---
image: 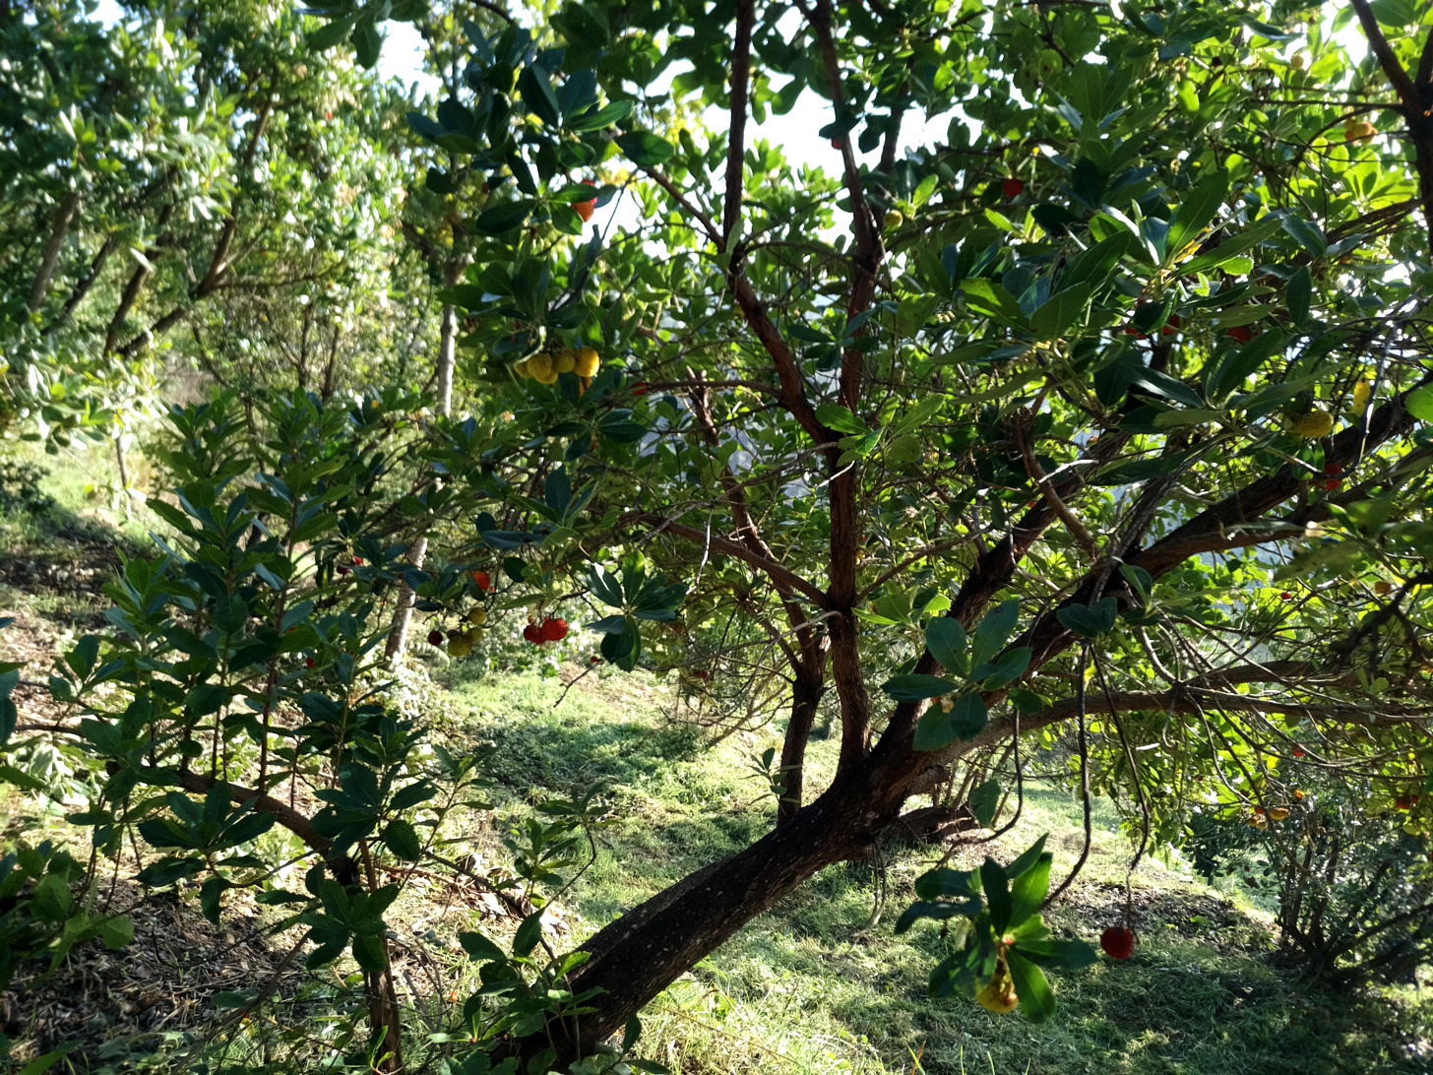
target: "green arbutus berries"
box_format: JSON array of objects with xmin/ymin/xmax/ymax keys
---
[
  {"xmin": 448, "ymin": 635, "xmax": 472, "ymax": 656},
  {"xmin": 1250, "ymin": 817, "xmax": 1258, "ymax": 826},
  {"xmin": 469, "ymin": 607, "xmax": 486, "ymax": 623},
  {"xmin": 1291, "ymin": 56, "xmax": 1304, "ymax": 67},
  {"xmin": 467, "ymin": 627, "xmax": 483, "ymax": 641},
  {"xmin": 883, "ymin": 209, "xmax": 903, "ymax": 228},
  {"xmin": 978, "ymin": 983, "xmax": 1019, "ymax": 1014},
  {"xmin": 1354, "ymin": 122, "xmax": 1371, "ymax": 135},
  {"xmin": 855, "ymin": 550, "xmax": 866, "ymax": 560},
  {"xmin": 855, "ymin": 557, "xmax": 861, "ymax": 566},
  {"xmin": 1344, "ymin": 118, "xmax": 1359, "ymax": 130},
  {"xmin": 1258, "ymin": 820, "xmax": 1268, "ymax": 830}
]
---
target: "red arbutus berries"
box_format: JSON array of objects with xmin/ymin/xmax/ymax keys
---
[
  {"xmin": 1100, "ymin": 925, "xmax": 1134, "ymax": 959},
  {"xmin": 337, "ymin": 563, "xmax": 350, "ymax": 574},
  {"xmin": 472, "ymin": 572, "xmax": 490, "ymax": 590},
  {"xmin": 1396, "ymin": 796, "xmax": 1412, "ymax": 810},
  {"xmin": 545, "ymin": 618, "xmax": 569, "ymax": 641},
  {"xmin": 306, "ymin": 657, "xmax": 316, "ymax": 668},
  {"xmin": 1281, "ymin": 591, "xmax": 1292, "ymax": 600},
  {"xmin": 1227, "ymin": 327, "xmax": 1250, "ymax": 342},
  {"xmin": 1163, "ymin": 314, "xmax": 1181, "ymax": 335},
  {"xmin": 1005, "ymin": 177, "xmax": 1025, "ymax": 197},
  {"xmin": 352, "ymin": 556, "xmax": 362, "ymax": 566},
  {"xmin": 523, "ymin": 625, "xmax": 539, "ymax": 641},
  {"xmin": 1255, "ymin": 806, "xmax": 1264, "ymax": 814},
  {"xmin": 631, "ymin": 382, "xmax": 648, "ymax": 397},
  {"xmin": 1315, "ymin": 460, "xmax": 1344, "ymax": 491},
  {"xmin": 428, "ymin": 630, "xmax": 442, "ymax": 645},
  {"xmin": 591, "ymin": 656, "xmax": 597, "ymax": 662},
  {"xmin": 1292, "ymin": 743, "xmax": 1307, "ymax": 757},
  {"xmin": 533, "ymin": 628, "xmax": 546, "ymax": 644},
  {"xmin": 1410, "ymin": 794, "xmax": 1419, "ymax": 805}
]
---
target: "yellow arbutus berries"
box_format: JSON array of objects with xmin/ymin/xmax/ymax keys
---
[
  {"xmin": 572, "ymin": 346, "xmax": 601, "ymax": 377},
  {"xmin": 514, "ymin": 359, "xmax": 532, "ymax": 378},
  {"xmin": 1345, "ymin": 130, "xmax": 1359, "ymax": 141},
  {"xmin": 1294, "ymin": 790, "xmax": 1304, "ymax": 800},
  {"xmin": 1270, "ymin": 807, "xmax": 1285, "ymax": 820},
  {"xmin": 554, "ymin": 350, "xmax": 576, "ymax": 374},
  {"xmin": 571, "ymin": 200, "xmax": 593, "ymax": 223},
  {"xmin": 1375, "ymin": 580, "xmax": 1392, "ymax": 594},
  {"xmin": 1300, "ymin": 410, "xmax": 1333, "ymax": 438},
  {"xmin": 528, "ymin": 353, "xmax": 553, "ymax": 378},
  {"xmin": 1280, "ymin": 809, "xmax": 1289, "ymax": 817}
]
